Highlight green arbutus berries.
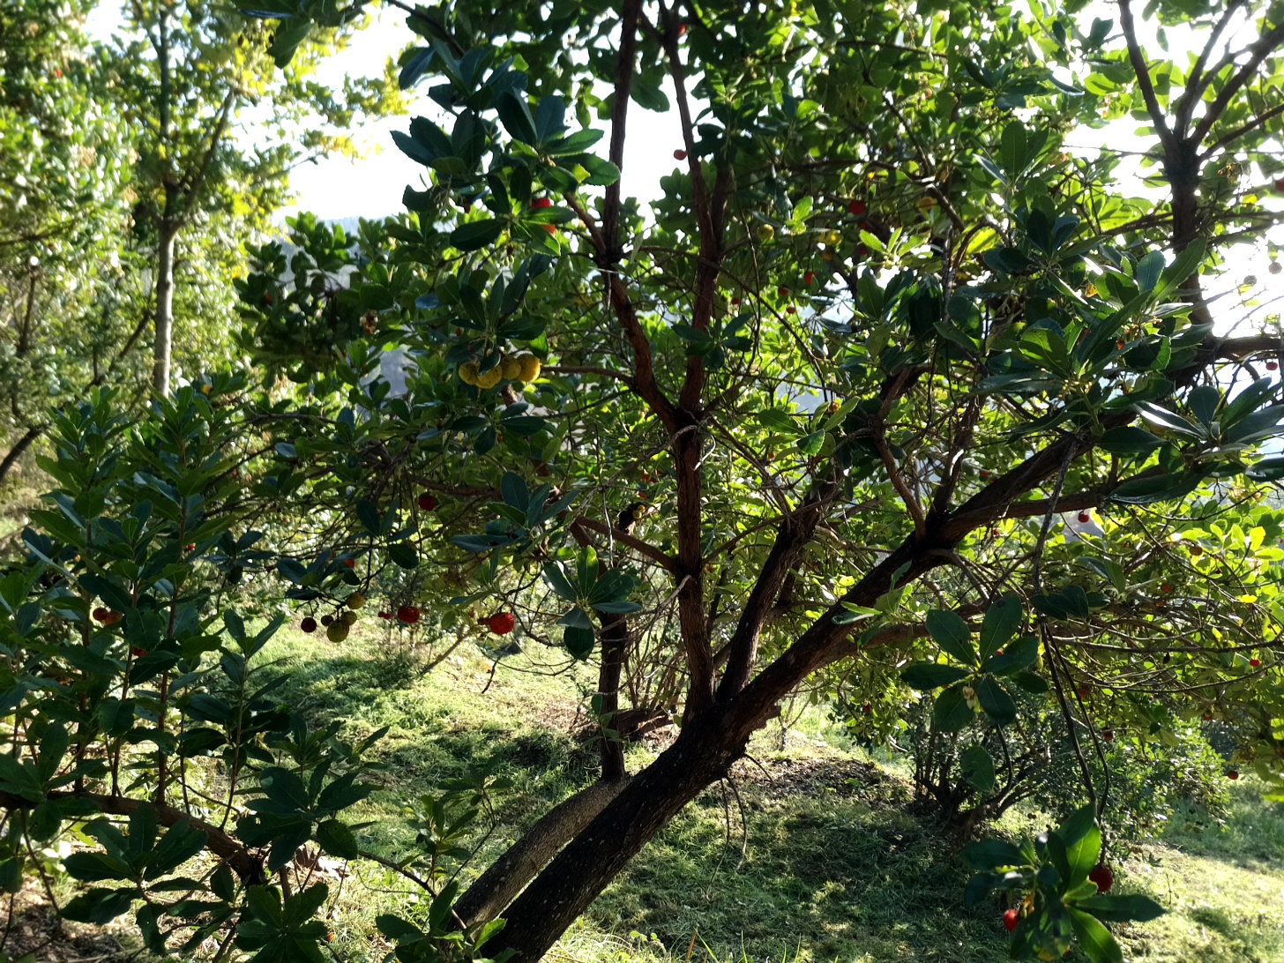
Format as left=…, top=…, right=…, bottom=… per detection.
left=755, top=223, right=774, bottom=239
left=346, top=592, right=365, bottom=609
left=341, top=611, right=357, bottom=625
left=327, top=620, right=350, bottom=643
left=1204, top=710, right=1211, bottom=717
left=921, top=197, right=933, bottom=209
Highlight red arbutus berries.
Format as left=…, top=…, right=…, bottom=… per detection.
left=1250, top=659, right=1260, bottom=668
left=992, top=529, right=999, bottom=535
left=379, top=611, right=384, bottom=617
left=1228, top=771, right=1238, bottom=780
left=385, top=614, right=390, bottom=619
left=1089, top=864, right=1114, bottom=892
left=398, top=605, right=419, bottom=623
left=1078, top=514, right=1089, bottom=523
left=1161, top=583, right=1173, bottom=593
left=138, top=649, right=147, bottom=657
left=132, top=646, right=140, bottom=655
left=104, top=611, right=123, bottom=627
left=301, top=618, right=316, bottom=633
left=805, top=272, right=817, bottom=285
left=732, top=298, right=740, bottom=304
left=93, top=606, right=107, bottom=621
left=530, top=198, right=552, bottom=212
left=860, top=247, right=867, bottom=255
left=674, top=149, right=685, bottom=160
left=863, top=703, right=872, bottom=713
left=489, top=612, right=514, bottom=635
left=849, top=200, right=865, bottom=216
left=1104, top=733, right=1113, bottom=740
left=1266, top=360, right=1278, bottom=371
left=787, top=307, right=795, bottom=314
left=778, top=286, right=789, bottom=295
left=1203, top=716, right=1212, bottom=721
left=978, top=466, right=990, bottom=476
left=1077, top=690, right=1087, bottom=699
left=1002, top=909, right=1019, bottom=934
left=418, top=495, right=438, bottom=510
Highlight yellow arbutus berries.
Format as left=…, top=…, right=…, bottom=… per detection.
left=478, top=365, right=502, bottom=384
left=632, top=510, right=643, bottom=519
left=823, top=250, right=833, bottom=260
left=459, top=362, right=479, bottom=384
left=499, top=355, right=520, bottom=377
left=637, top=505, right=645, bottom=512
left=767, top=452, right=776, bottom=459
left=1189, top=546, right=1202, bottom=556
left=829, top=401, right=841, bottom=411
left=516, top=353, right=541, bottom=382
